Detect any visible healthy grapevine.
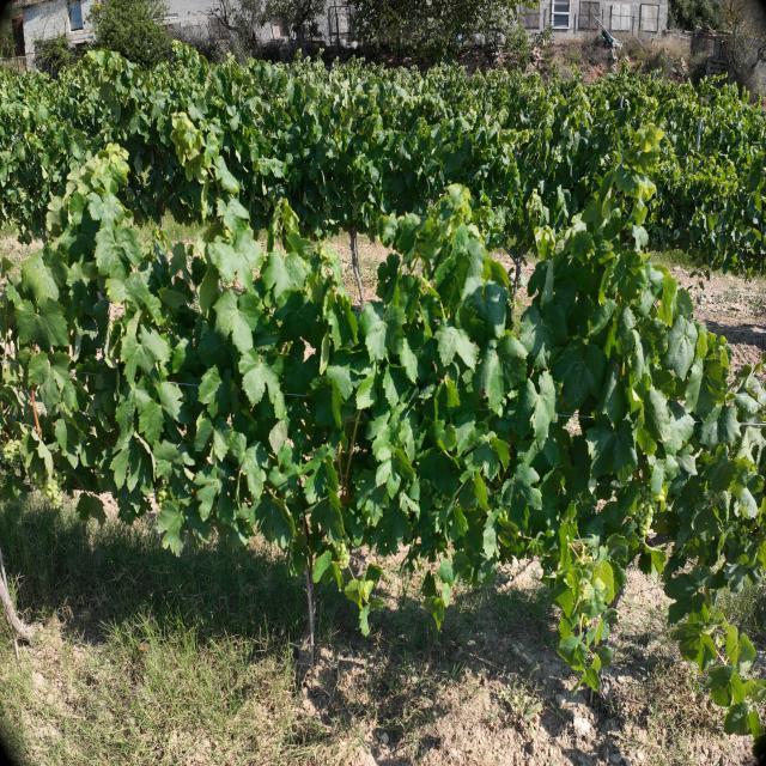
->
[0,221,712,713]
